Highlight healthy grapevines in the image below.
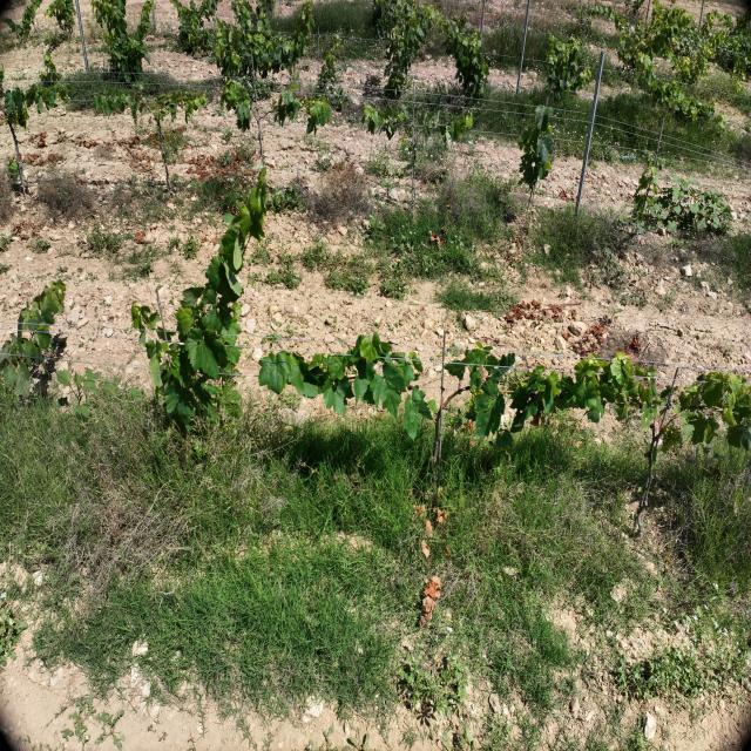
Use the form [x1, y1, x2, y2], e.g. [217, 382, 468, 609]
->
[547, 345, 751, 562]
[128, 158, 276, 461]
[252, 325, 576, 502]
[0, 275, 73, 421]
